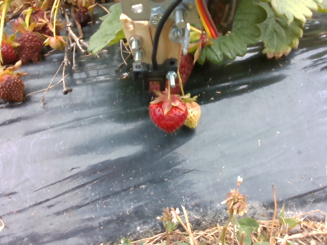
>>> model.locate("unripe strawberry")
[182,97,202,130]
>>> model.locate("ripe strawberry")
[147,95,190,132]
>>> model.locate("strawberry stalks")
[167,79,170,109]
[176,71,187,106]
